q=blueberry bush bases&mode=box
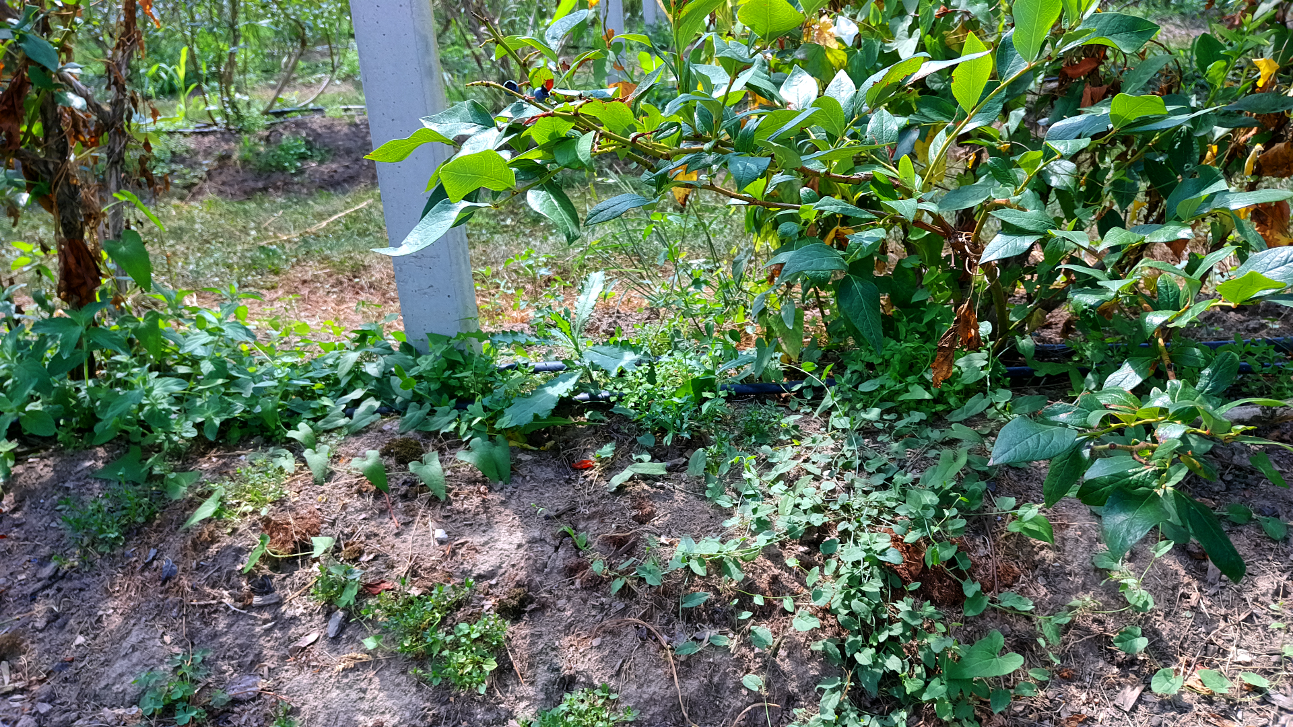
[0,207,183,499]
[744,176,1126,458]
[178,82,309,167]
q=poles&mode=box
[597,7,634,92]
[348,25,508,363]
